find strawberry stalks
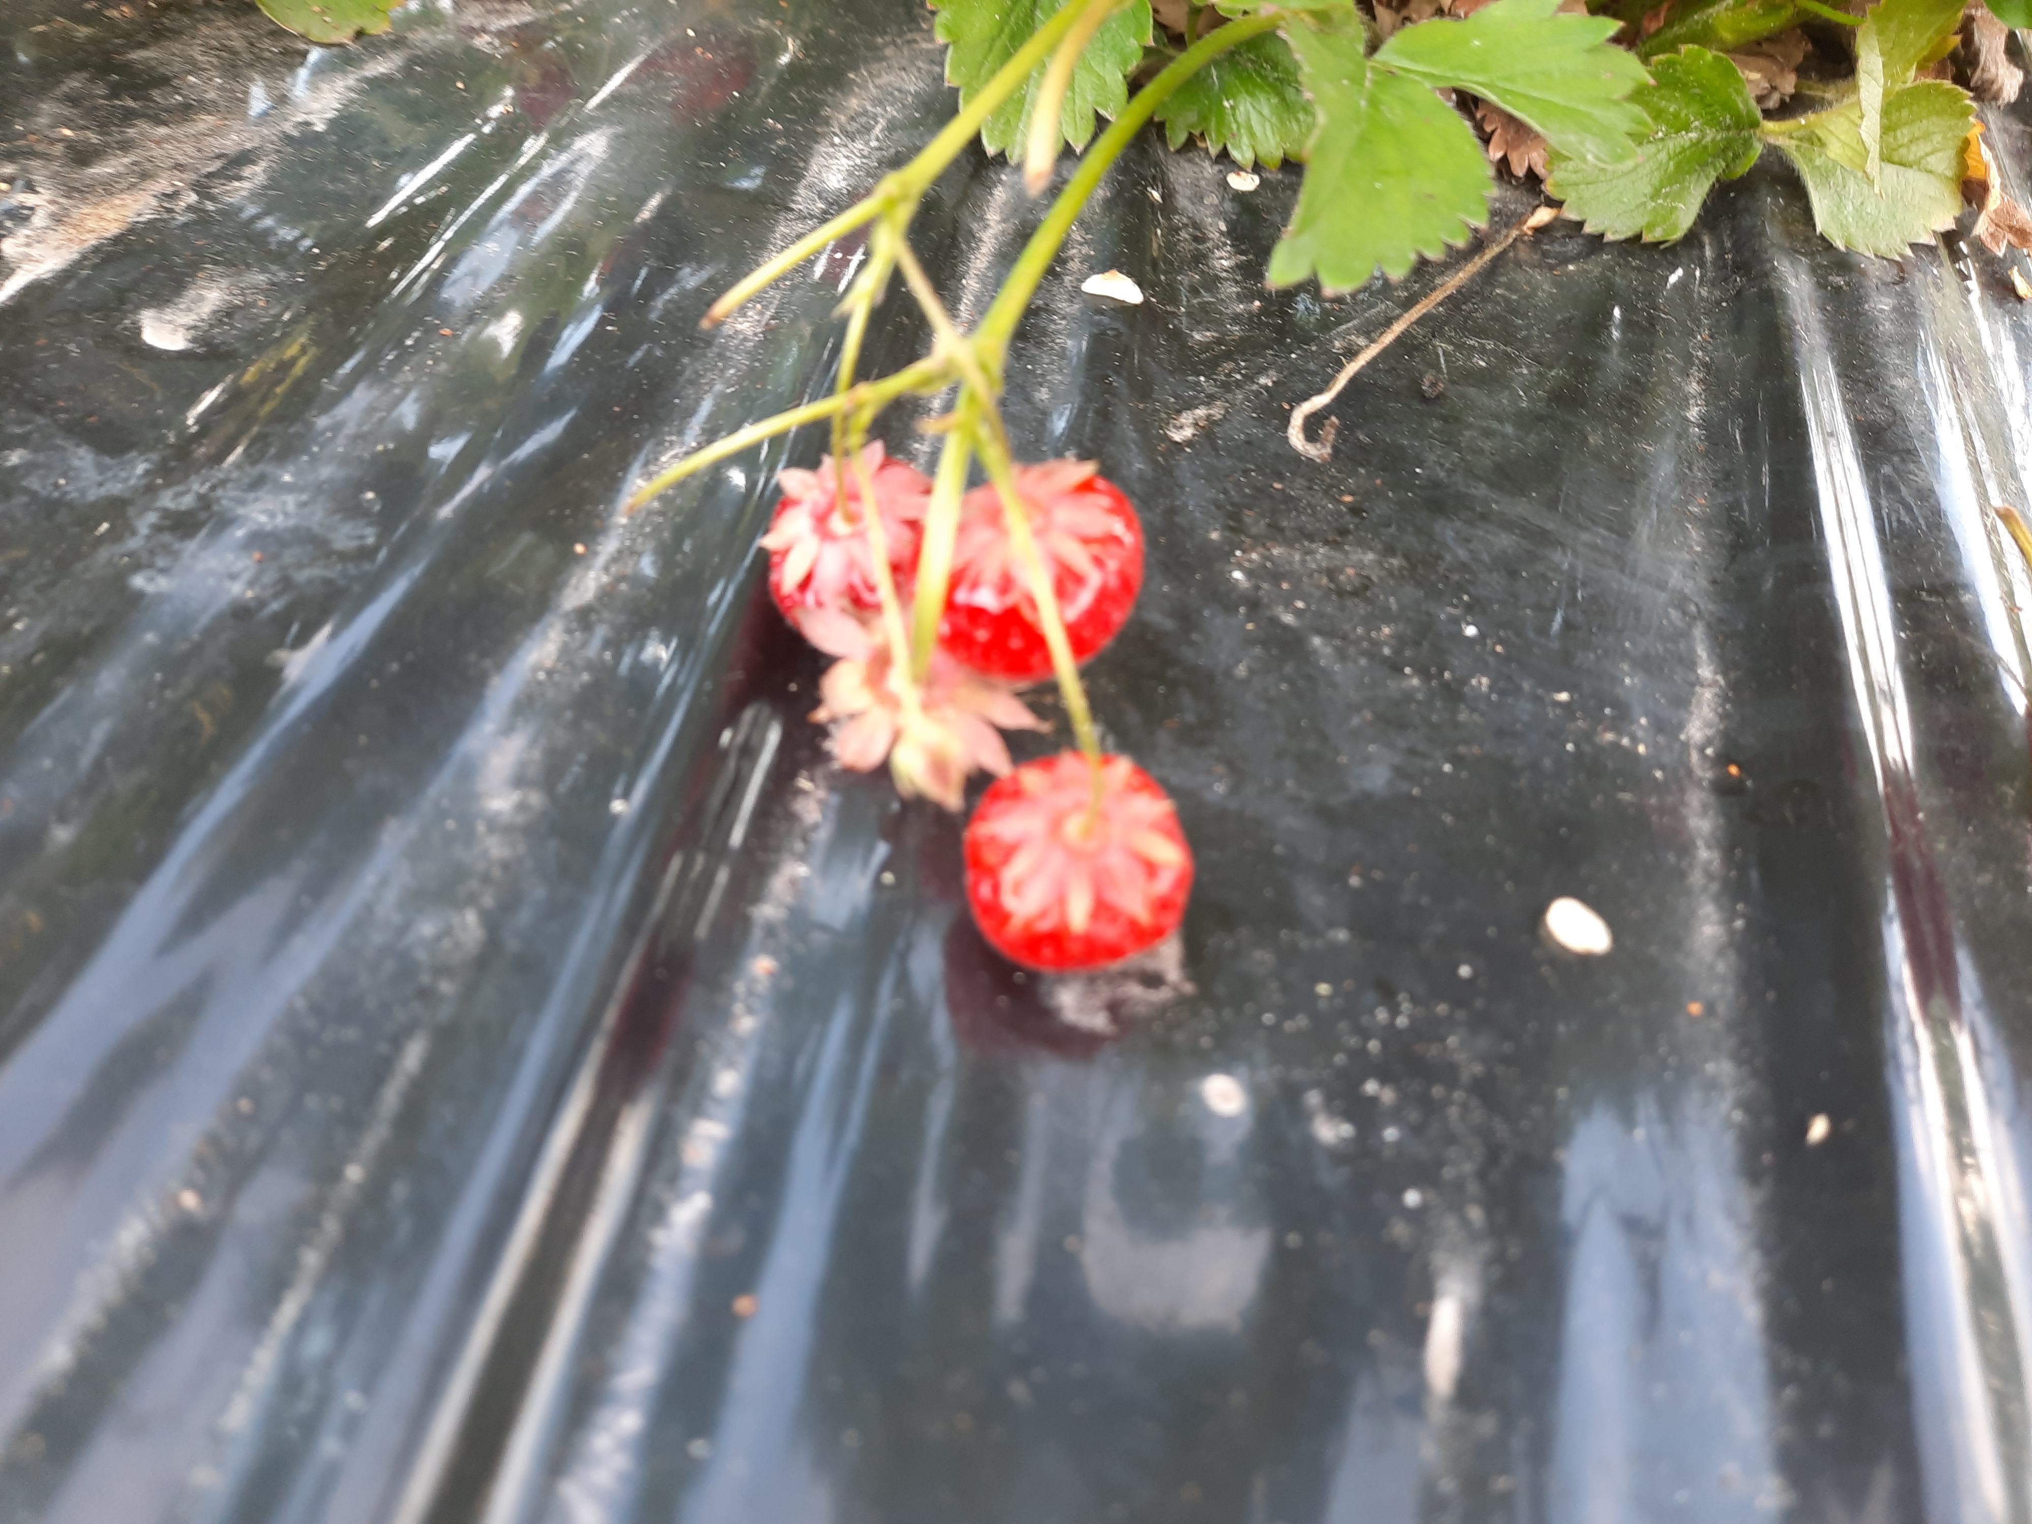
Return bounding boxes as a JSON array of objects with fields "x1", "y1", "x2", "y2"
[
  {"x1": 815, "y1": 267, "x2": 889, "y2": 546},
  {"x1": 992, "y1": 455, "x2": 1110, "y2": 824}
]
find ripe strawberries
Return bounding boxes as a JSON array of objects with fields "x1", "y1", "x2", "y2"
[
  {"x1": 769, "y1": 466, "x2": 932, "y2": 640},
  {"x1": 935, "y1": 470, "x2": 1140, "y2": 663},
  {"x1": 977, "y1": 753, "x2": 1190, "y2": 966}
]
